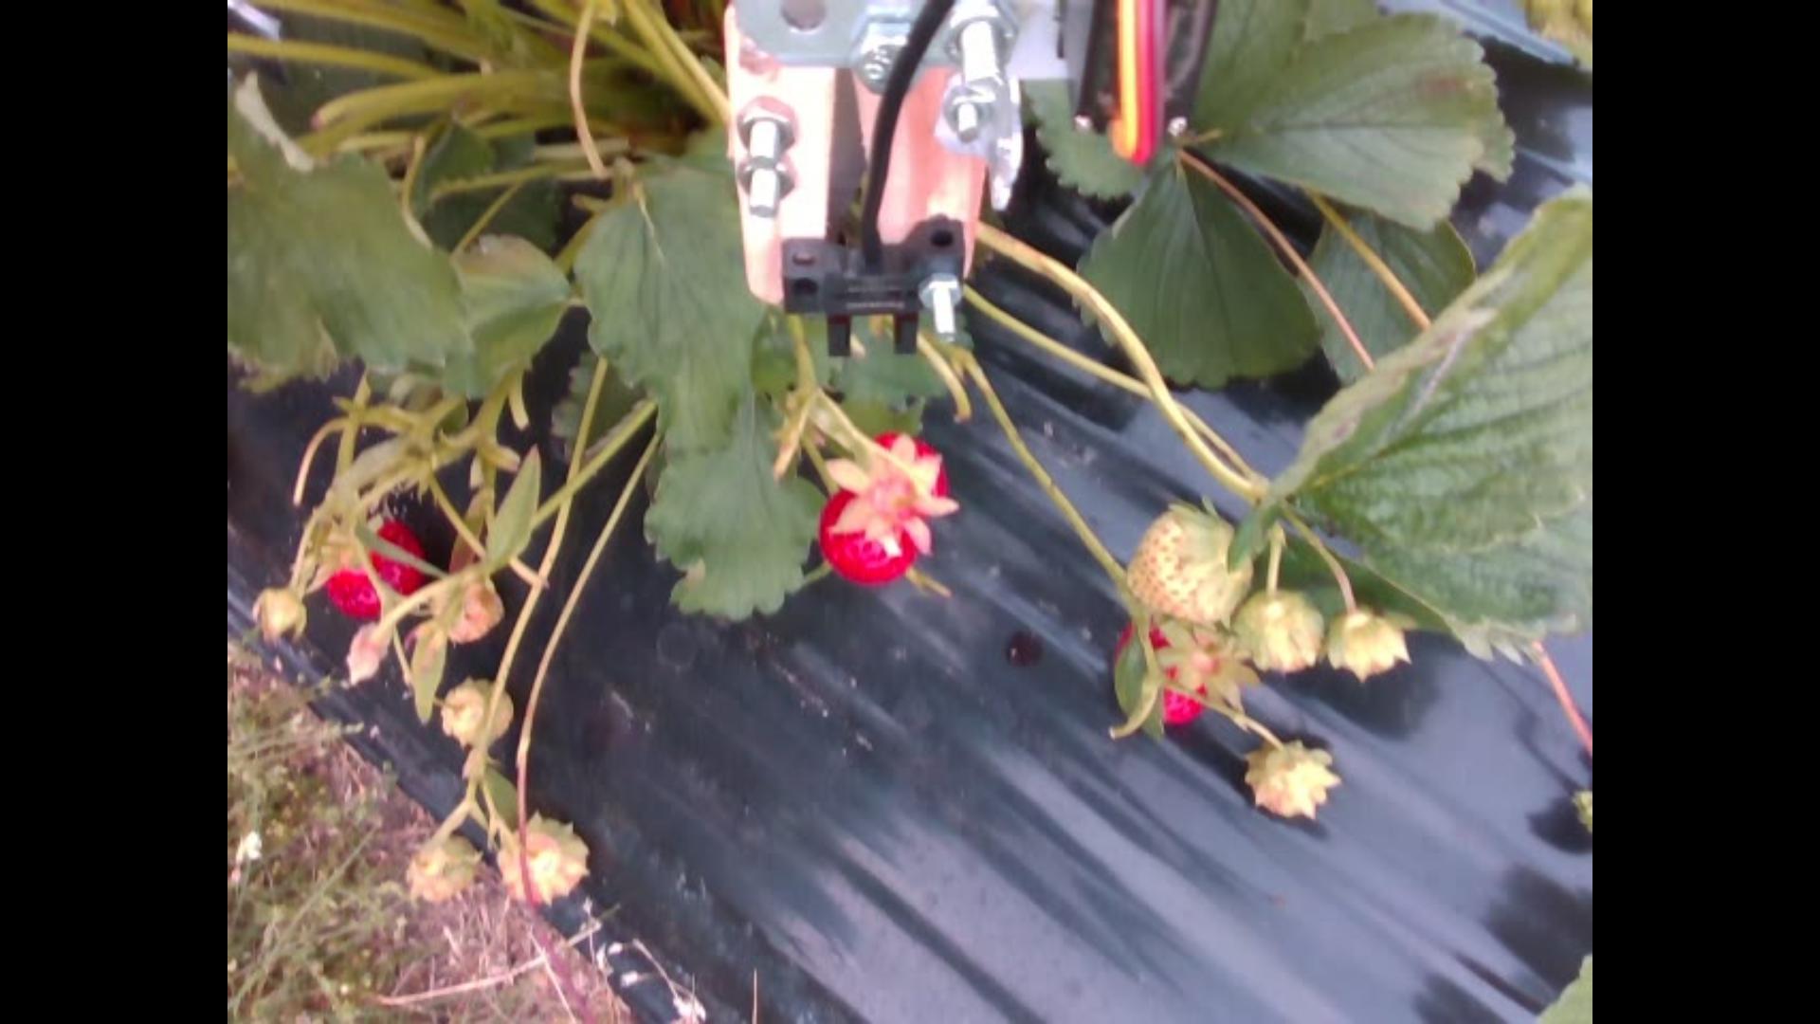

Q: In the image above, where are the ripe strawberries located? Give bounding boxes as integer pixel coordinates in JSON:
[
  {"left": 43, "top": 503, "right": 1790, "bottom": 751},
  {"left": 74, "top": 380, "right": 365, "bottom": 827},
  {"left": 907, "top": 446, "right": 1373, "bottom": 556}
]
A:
[
  {"left": 873, "top": 428, "right": 965, "bottom": 521},
  {"left": 1111, "top": 620, "right": 1213, "bottom": 730},
  {"left": 314, "top": 504, "right": 434, "bottom": 626},
  {"left": 815, "top": 485, "right": 925, "bottom": 593}
]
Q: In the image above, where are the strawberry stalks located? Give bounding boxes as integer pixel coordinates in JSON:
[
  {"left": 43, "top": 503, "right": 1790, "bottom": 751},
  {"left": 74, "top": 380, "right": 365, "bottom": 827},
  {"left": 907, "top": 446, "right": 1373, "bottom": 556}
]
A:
[
  {"left": 319, "top": 489, "right": 377, "bottom": 567},
  {"left": 417, "top": 681, "right": 474, "bottom": 726},
  {"left": 413, "top": 811, "right": 450, "bottom": 881},
  {"left": 1254, "top": 709, "right": 1305, "bottom": 770},
  {"left": 1335, "top": 558, "right": 1368, "bottom": 628},
  {"left": 857, "top": 388, "right": 914, "bottom": 518},
  {"left": 498, "top": 817, "right": 545, "bottom": 875},
  {"left": 1258, "top": 559, "right": 1293, "bottom": 620},
  {"left": 268, "top": 545, "right": 304, "bottom": 612}
]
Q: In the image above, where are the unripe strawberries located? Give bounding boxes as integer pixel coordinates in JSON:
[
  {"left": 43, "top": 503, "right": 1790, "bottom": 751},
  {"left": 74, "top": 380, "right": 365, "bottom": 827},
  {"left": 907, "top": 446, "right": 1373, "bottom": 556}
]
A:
[
  {"left": 1242, "top": 732, "right": 1338, "bottom": 823},
  {"left": 427, "top": 569, "right": 508, "bottom": 645},
  {"left": 441, "top": 674, "right": 516, "bottom": 748},
  {"left": 1114, "top": 496, "right": 1256, "bottom": 628},
  {"left": 496, "top": 817, "right": 591, "bottom": 907},
  {"left": 406, "top": 830, "right": 475, "bottom": 905},
  {"left": 1325, "top": 610, "right": 1420, "bottom": 684},
  {"left": 1227, "top": 589, "right": 1327, "bottom": 681}
]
